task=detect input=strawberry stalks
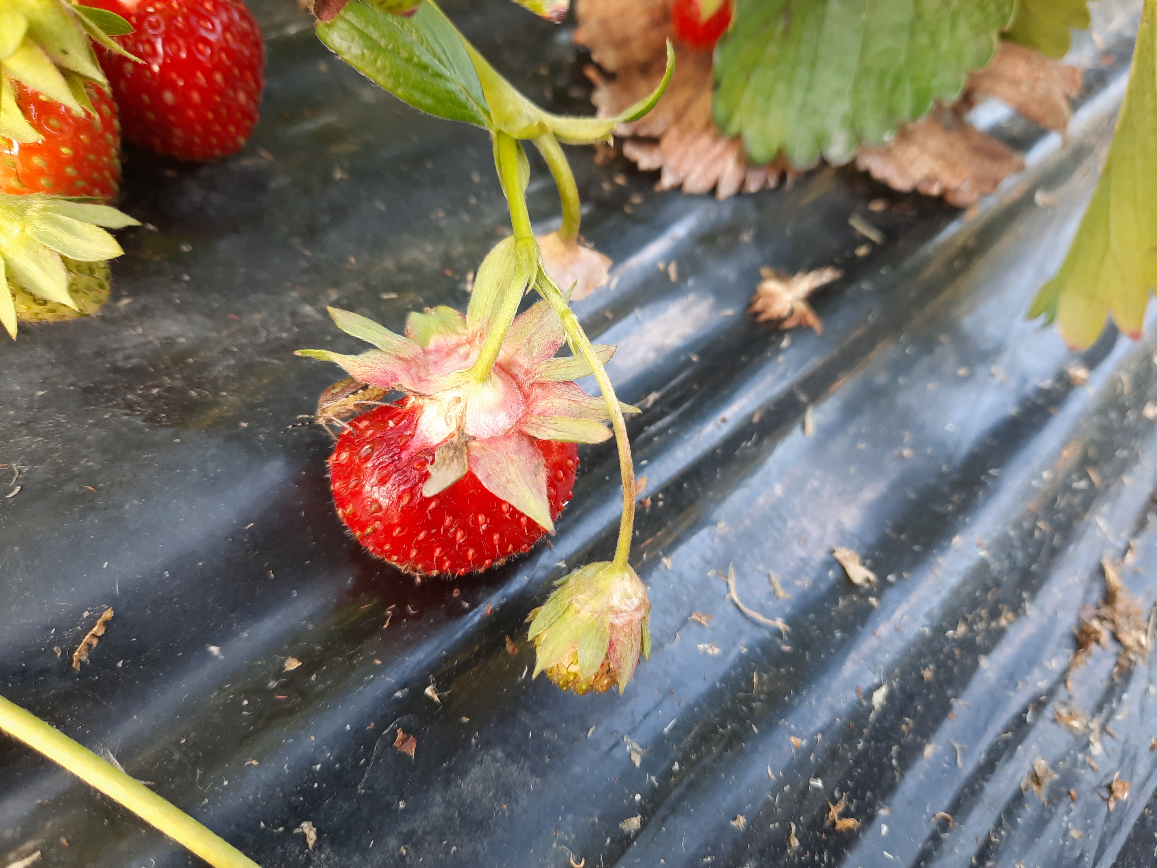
[470,222,524,421]
[605,372,650,593]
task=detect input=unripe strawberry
[539,562,645,694]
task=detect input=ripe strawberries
[0,43,121,232]
[319,360,580,576]
[90,0,292,150]
[650,0,751,53]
